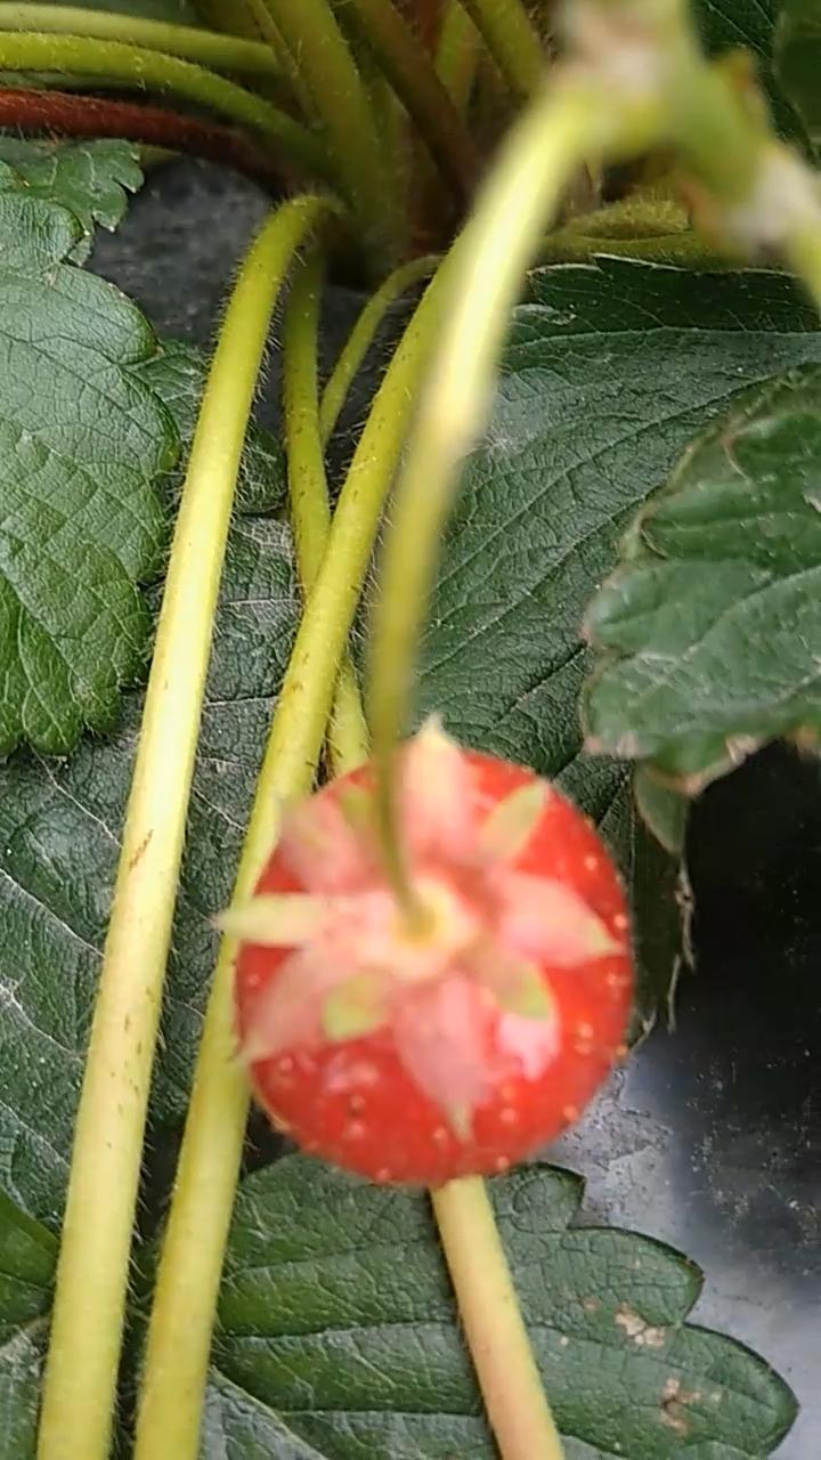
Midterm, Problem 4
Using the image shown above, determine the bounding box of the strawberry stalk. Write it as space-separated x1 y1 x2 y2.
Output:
338 322 498 986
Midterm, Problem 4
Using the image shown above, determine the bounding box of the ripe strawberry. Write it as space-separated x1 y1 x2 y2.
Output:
231 747 639 1173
